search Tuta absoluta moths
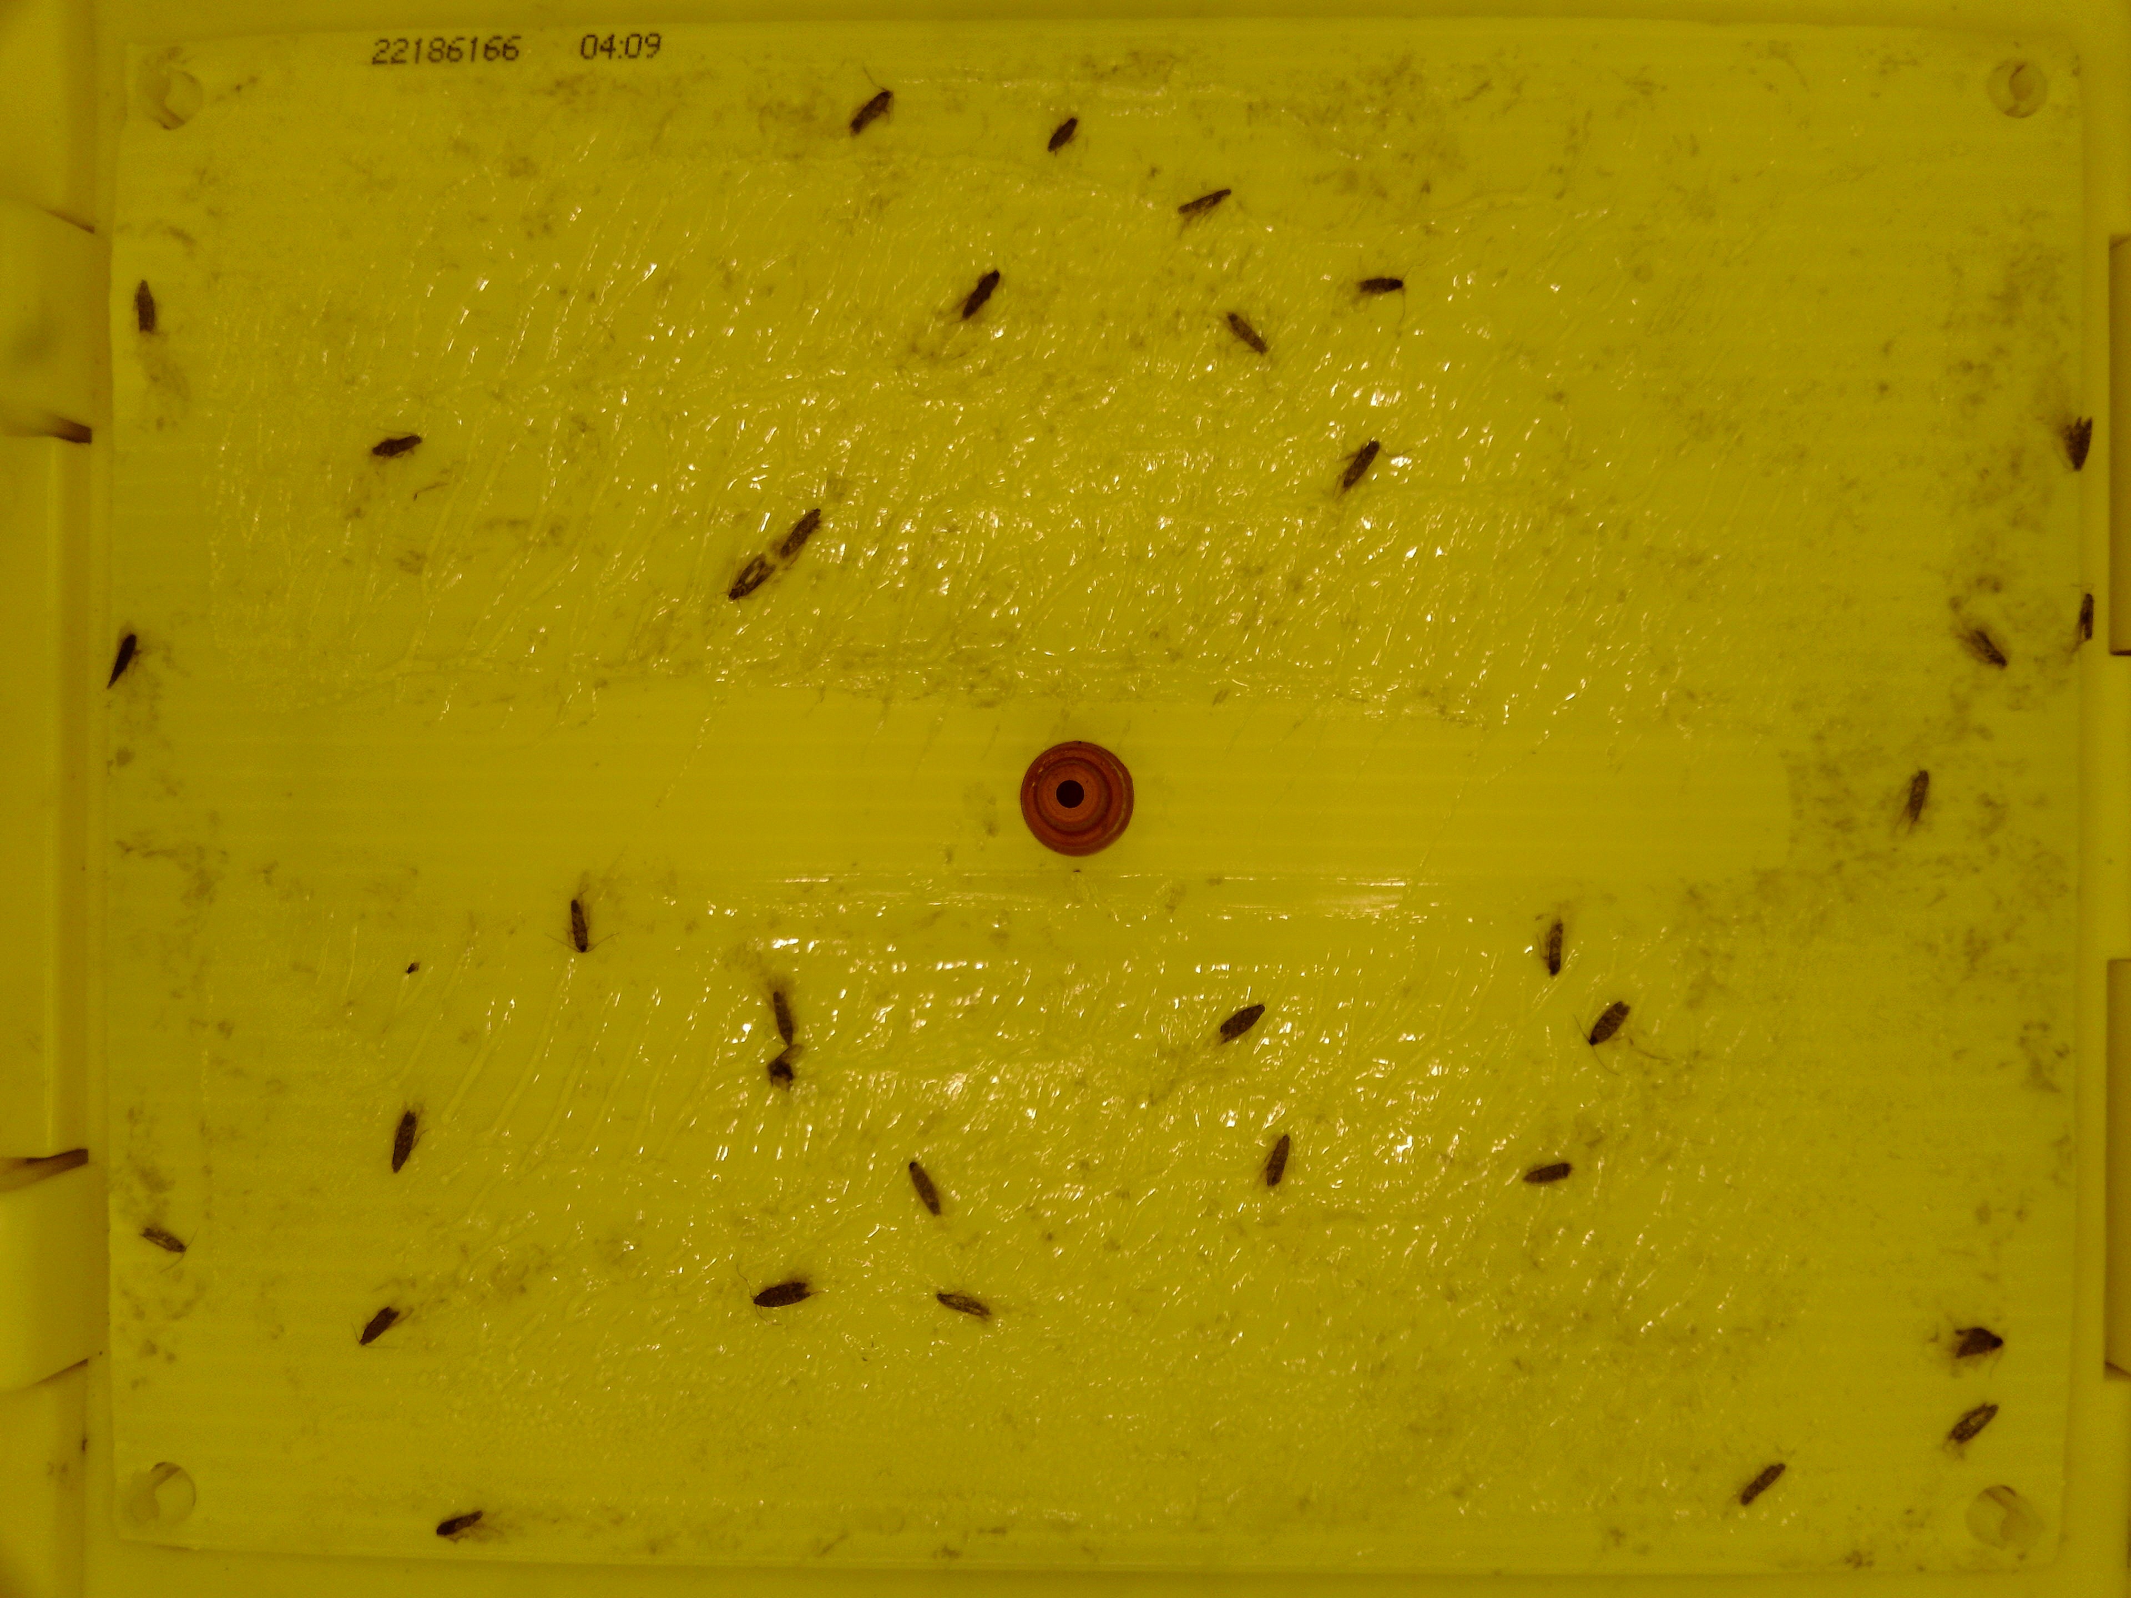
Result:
[105,628,140,687]
[1951,1323,2003,1363]
[1522,1159,1571,1186]
[752,1274,815,1309]
[358,1303,403,1345]
[1540,917,1564,975]
[428,1505,492,1538]
[1585,998,1629,1046]
[1223,309,1268,355]
[905,1157,941,1215]
[2061,414,2091,469]
[128,274,159,338]
[1176,185,1231,228]
[1738,1460,1785,1505]
[1261,1131,1290,1187]
[1970,624,2014,673]
[1944,1399,1997,1449]
[958,266,1001,320]
[783,505,832,555]
[2071,585,2099,646]
[371,432,422,459]
[1046,114,1078,153]
[847,87,893,135]
[562,895,595,966]
[1335,437,1380,493]
[388,1105,422,1172]
[720,549,774,604]
[1894,766,1930,833]
[137,1220,190,1257]
[1355,274,1404,307]
[766,982,797,1044]
[933,1287,991,1321]
[1217,1000,1265,1044]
